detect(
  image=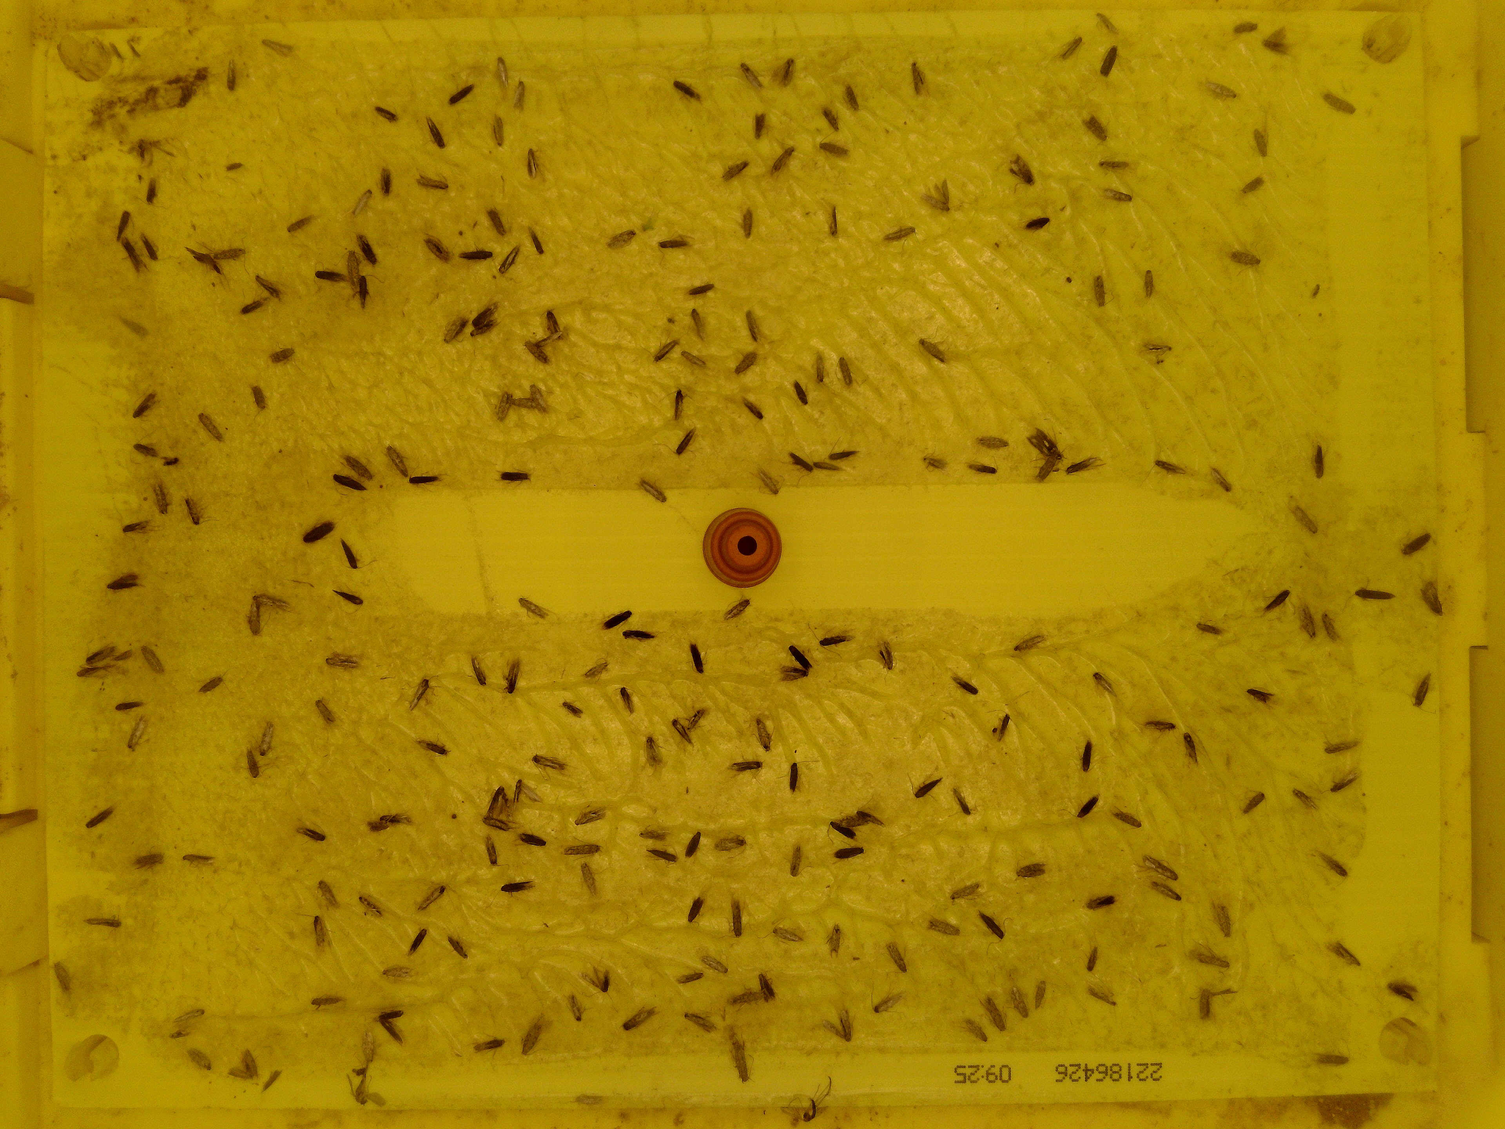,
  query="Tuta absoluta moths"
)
[685,829,703,857]
[1315,1047,1350,1069]
[722,157,749,182]
[844,82,860,112]
[513,77,527,111]
[950,877,981,901]
[378,163,393,197]
[787,759,800,794]
[601,606,632,631]
[1092,272,1107,309]
[388,441,409,478]
[1253,127,1270,158]
[132,391,157,421]
[585,659,609,680]
[684,895,705,925]
[690,305,706,341]
[374,104,399,123]
[1420,578,1443,618]
[455,246,493,265]
[739,60,763,92]
[771,143,795,177]
[672,387,685,423]
[1398,528,1432,556]
[250,383,268,413]
[1011,982,1031,1020]
[502,657,521,693]
[446,78,476,105]
[1099,44,1119,78]
[952,787,972,815]
[245,746,260,778]
[499,877,535,897]
[1239,174,1264,196]
[1244,683,1277,707]
[1092,668,1115,697]
[672,78,704,103]
[1142,268,1157,301]
[354,230,378,264]
[519,1013,549,1053]
[689,641,705,675]
[575,1089,603,1109]
[1065,454,1103,476]
[702,949,728,974]
[921,453,949,472]
[914,774,943,802]
[286,214,315,236]
[1141,849,1178,880]
[1148,882,1182,902]
[516,829,548,850]
[1299,603,1316,639]
[314,695,336,727]
[54,958,73,996]
[674,428,696,458]
[818,632,853,650]
[1209,464,1233,494]
[1016,859,1047,882]
[500,243,520,275]
[406,925,428,957]
[499,468,532,485]
[104,572,141,593]
[656,233,690,253]
[838,355,856,388]
[753,715,772,751]
[926,917,961,942]
[817,140,850,158]
[830,817,856,840]
[1109,807,1143,830]
[314,266,350,288]
[581,861,600,899]
[1075,793,1100,820]
[1184,729,1200,766]
[740,205,755,238]
[490,115,505,145]
[727,1023,751,1084]
[687,278,714,298]
[883,223,919,243]
[126,715,148,752]
[123,242,147,273]
[827,202,840,237]
[1154,457,1188,477]
[84,804,113,831]
[518,595,548,619]
[729,895,744,938]
[529,224,547,256]
[310,993,344,1011]
[560,699,585,718]
[790,841,803,877]
[753,110,765,142]
[785,643,813,672]
[1291,501,1318,535]
[355,890,386,919]
[269,345,296,365]
[605,225,640,250]
[831,845,865,862]
[331,470,363,493]
[919,332,948,365]
[1232,19,1259,36]
[423,115,446,148]
[823,105,840,132]
[319,877,339,909]
[1313,442,1325,479]
[198,409,223,445]
[651,335,680,359]
[196,672,225,698]
[952,673,980,696]
[442,313,467,341]
[183,244,223,277]
[153,478,171,516]
[639,476,668,505]
[714,832,747,853]
[675,967,703,988]
[486,204,506,236]
[1229,246,1262,268]
[641,845,677,863]
[1193,619,1227,639]
[1022,212,1053,232]
[1321,88,1358,118]
[741,395,764,421]
[446,931,471,960]
[240,298,264,316]
[684,1010,717,1036]
[728,755,762,775]
[471,301,499,329]
[887,938,908,975]
[976,431,1010,452]
[302,517,335,545]
[1014,630,1048,655]
[779,56,794,87]
[1386,978,1419,1003]
[1080,738,1094,775]
[187,1046,214,1073]
[756,465,780,494]
[349,185,373,214]
[1242,789,1267,819]
[1060,32,1082,61]
[977,911,1005,942]
[1202,77,1238,102]
[83,910,123,933]
[733,349,757,377]
[1413,671,1433,707]
[494,54,511,87]
[1264,586,1290,614]
[526,146,541,176]
[793,378,809,404]
[295,823,327,842]
[910,59,927,95]
[1086,891,1118,913]
[1323,609,1340,640]
[471,655,490,688]
[1010,151,1035,184]
[966,458,999,476]
[417,737,451,758]
[183,492,201,525]
[963,1018,988,1047]
[723,597,753,620]
[143,642,165,674]
[759,971,776,1002]
[134,848,166,871]
[1329,940,1362,972]
[1085,112,1108,140]
[336,588,365,606]
[415,172,450,191]
[408,676,427,713]
[1316,849,1349,879]
[1143,717,1177,733]
[1289,787,1317,814]
[1355,585,1397,604]
[112,208,130,242]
